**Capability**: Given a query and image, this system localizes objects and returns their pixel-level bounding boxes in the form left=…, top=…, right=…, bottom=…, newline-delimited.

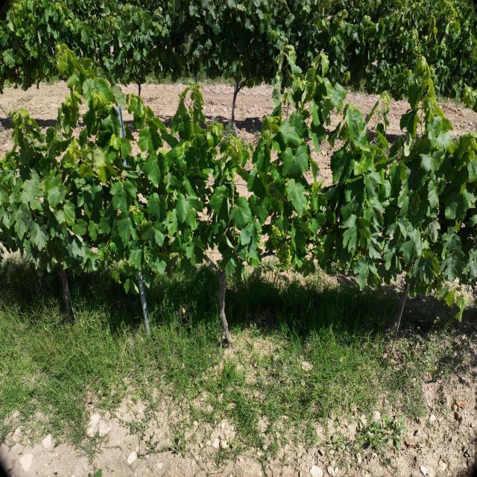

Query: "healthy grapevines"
left=130, top=80, right=329, bottom=367
left=0, top=80, right=130, bottom=332
left=328, top=74, right=477, bottom=364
